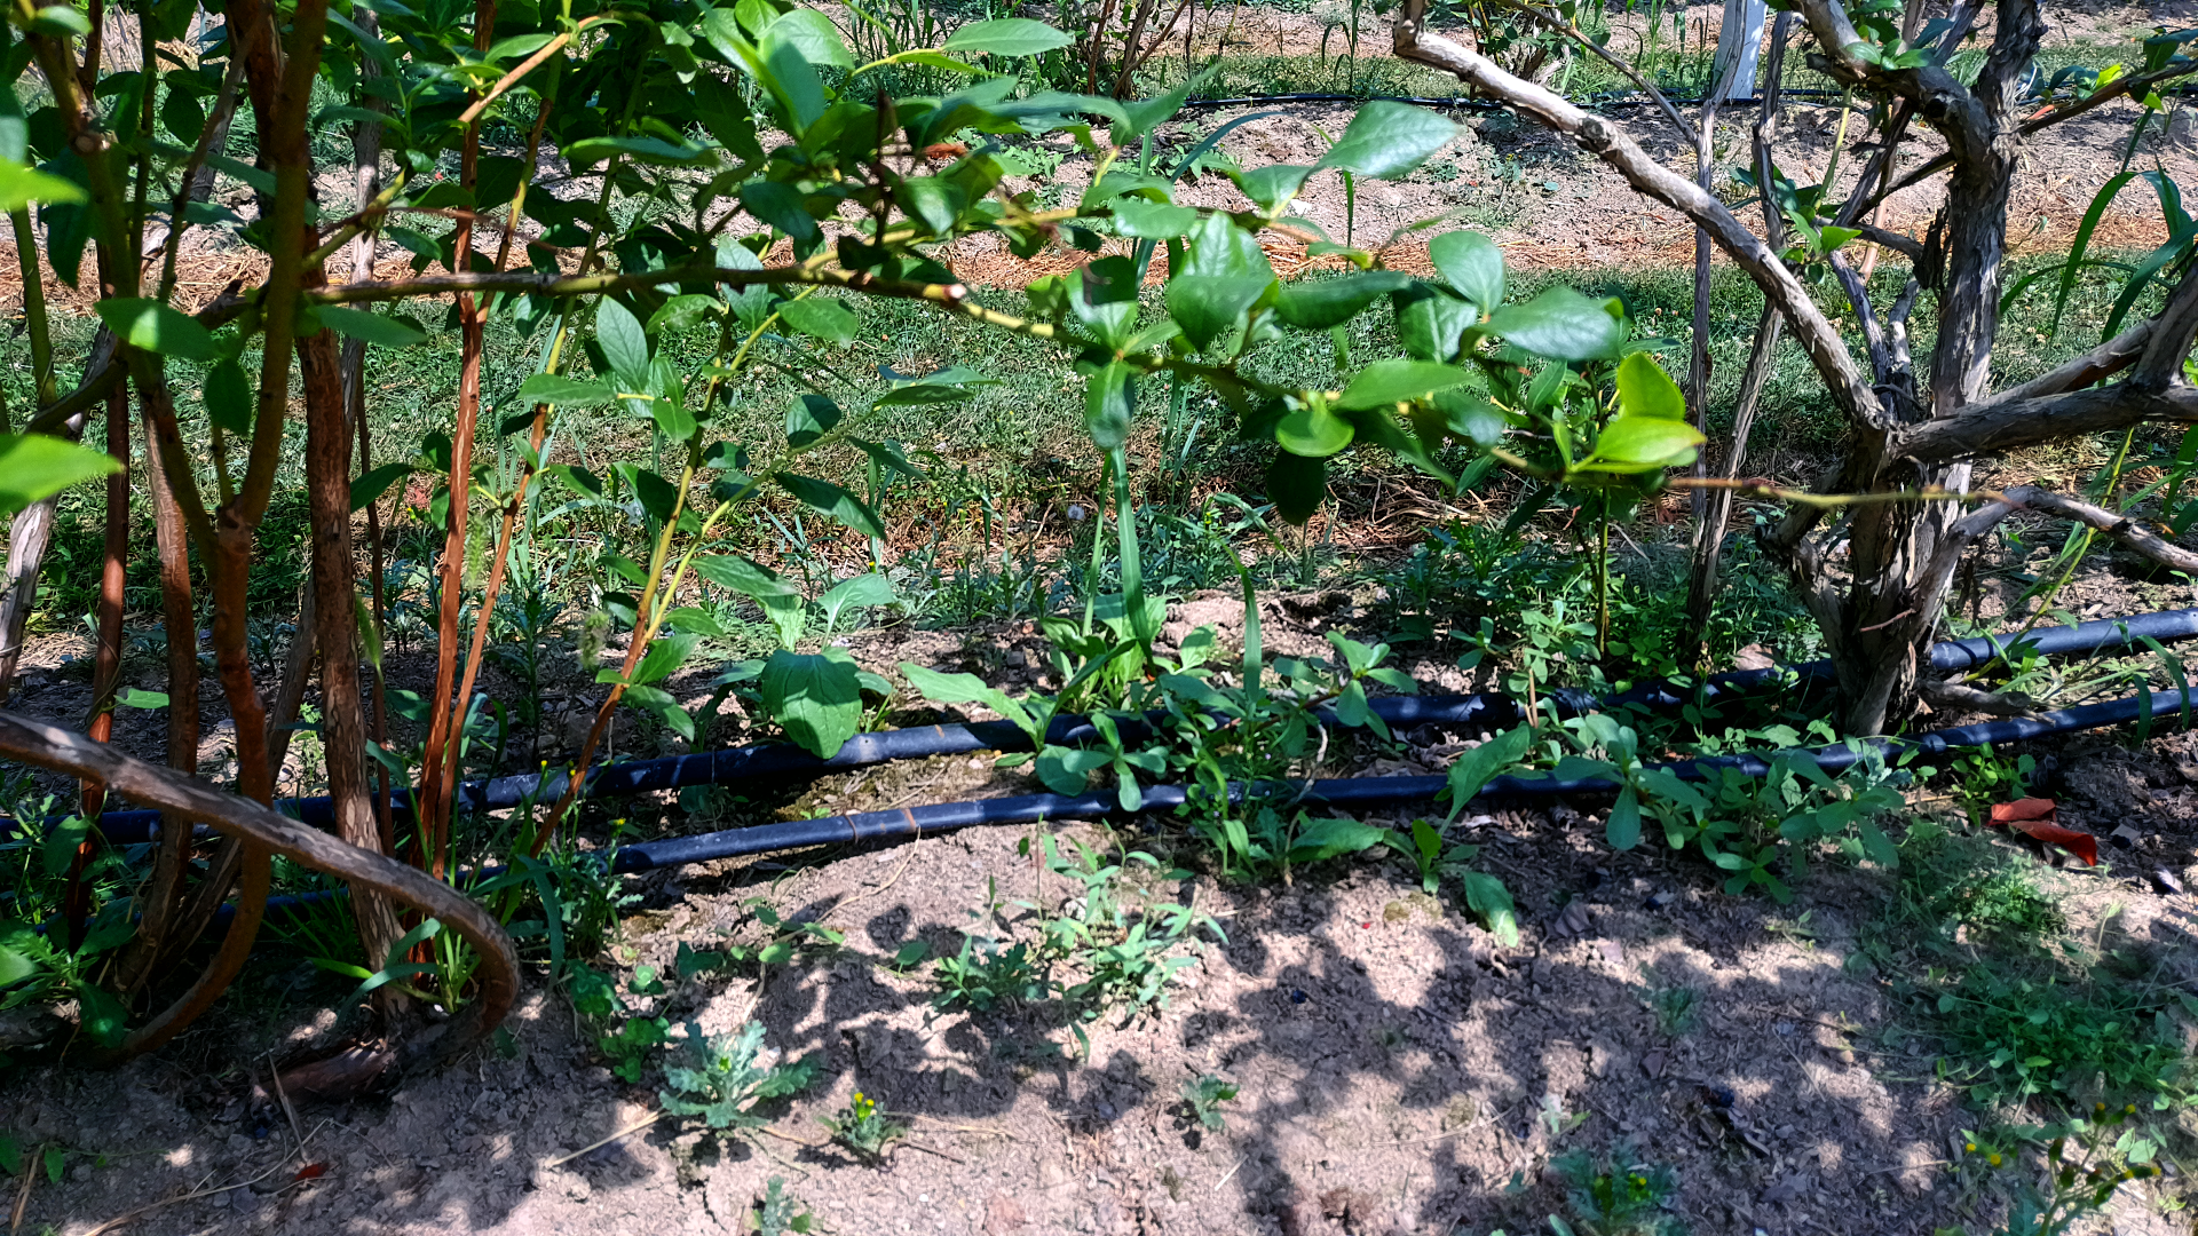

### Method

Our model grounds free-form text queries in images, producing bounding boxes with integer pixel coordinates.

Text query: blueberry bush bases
[1529,402,2117,823]
[1045,20,1176,130]
[8,591,645,1152]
